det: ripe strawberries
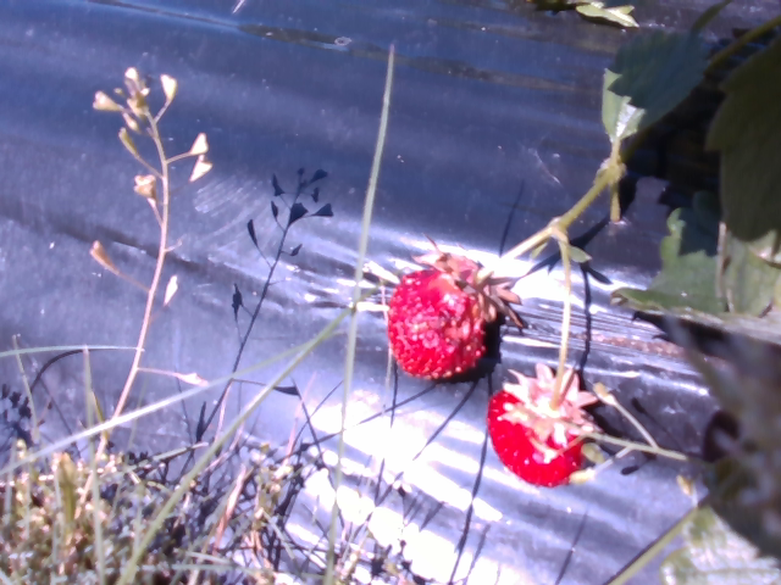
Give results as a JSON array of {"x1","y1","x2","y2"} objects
[
  {"x1": 491, "y1": 382, "x2": 604, "y2": 490},
  {"x1": 385, "y1": 272, "x2": 488, "y2": 383}
]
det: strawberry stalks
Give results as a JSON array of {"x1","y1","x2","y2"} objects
[
  {"x1": 550, "y1": 288, "x2": 572, "y2": 399},
  {"x1": 455, "y1": 230, "x2": 554, "y2": 290}
]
